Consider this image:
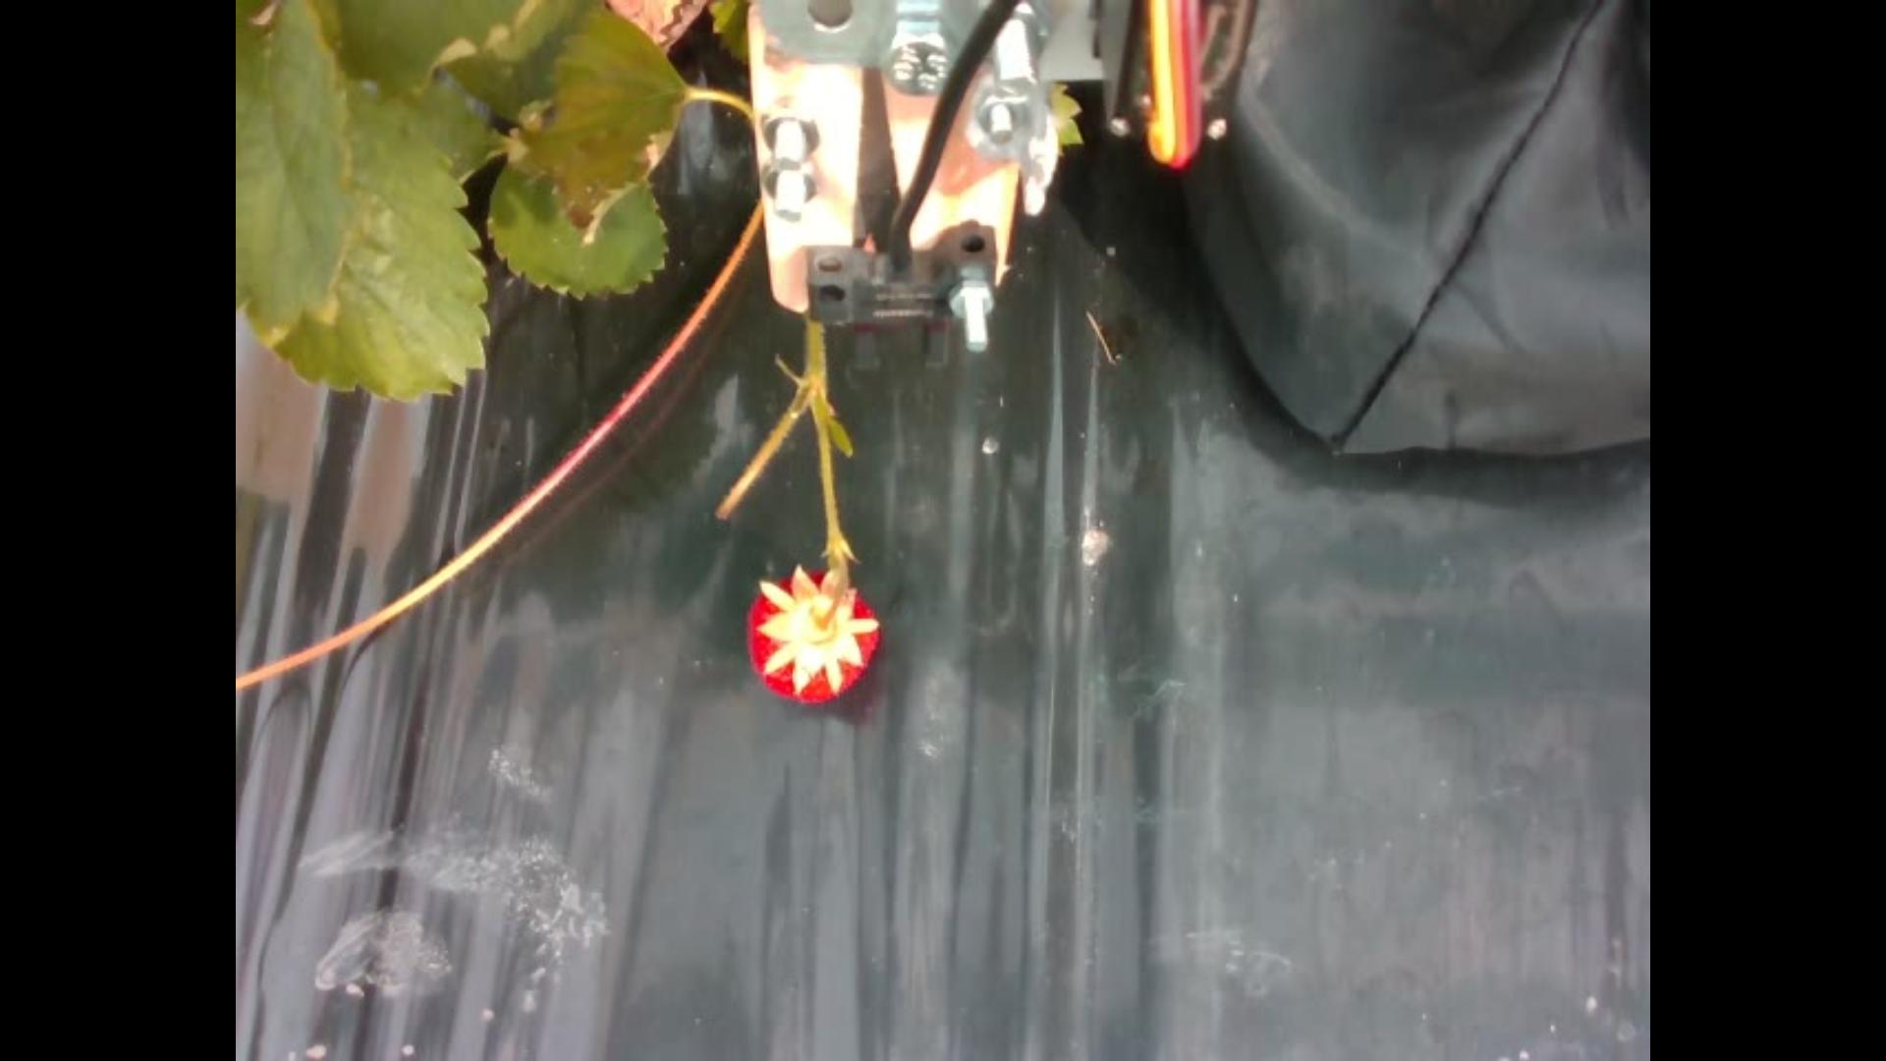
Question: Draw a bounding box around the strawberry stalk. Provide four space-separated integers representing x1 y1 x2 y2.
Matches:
805 385 863 636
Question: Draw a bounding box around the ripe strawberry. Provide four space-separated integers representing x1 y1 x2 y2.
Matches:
733 568 895 707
